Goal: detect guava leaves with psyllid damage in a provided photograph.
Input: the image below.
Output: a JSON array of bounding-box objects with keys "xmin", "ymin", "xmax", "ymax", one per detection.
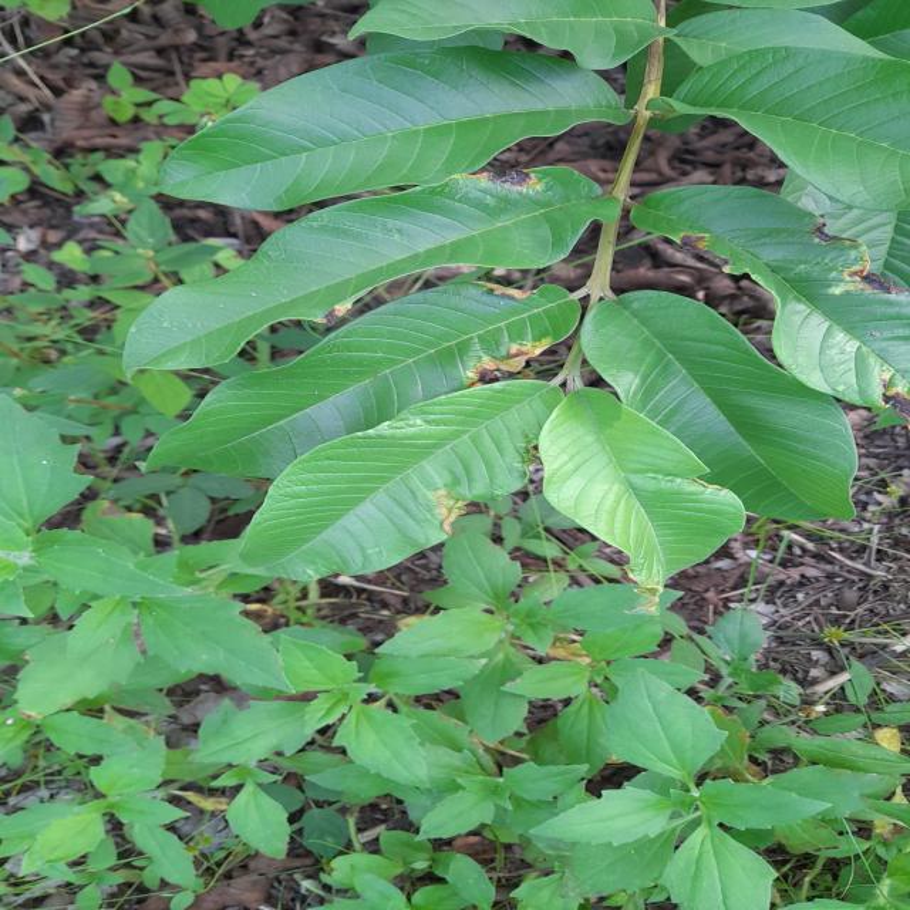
[
  {"xmin": 175, "ymin": 378, "xmax": 563, "ymax": 587},
  {"xmin": 111, "ymin": 154, "xmax": 644, "ymax": 388}
]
